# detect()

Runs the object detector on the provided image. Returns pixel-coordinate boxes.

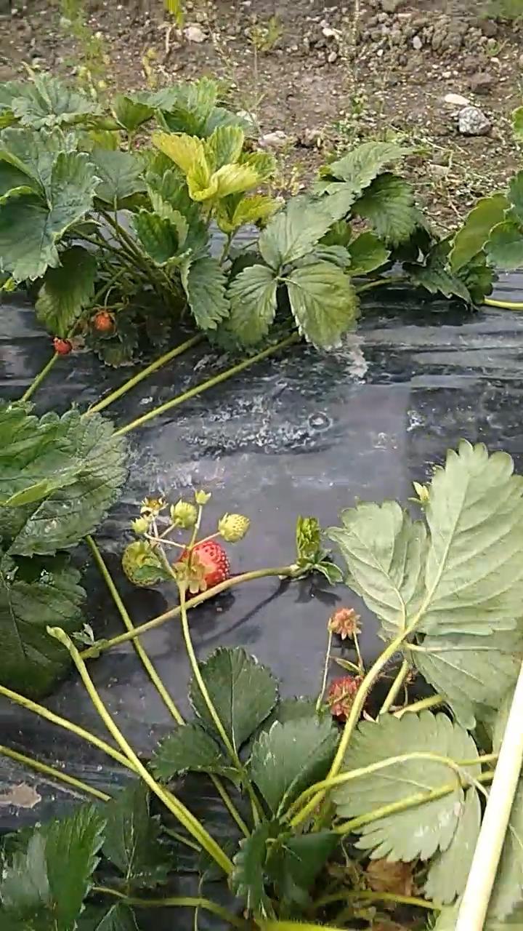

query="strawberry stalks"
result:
[206,517,231,543]
[169,566,212,612]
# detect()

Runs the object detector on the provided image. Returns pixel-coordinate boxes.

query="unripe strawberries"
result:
[167,498,197,529]
[212,501,248,545]
[123,537,176,592]
[93,308,118,333]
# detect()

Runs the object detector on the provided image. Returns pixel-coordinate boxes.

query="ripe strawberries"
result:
[49,335,79,361]
[176,535,233,591]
